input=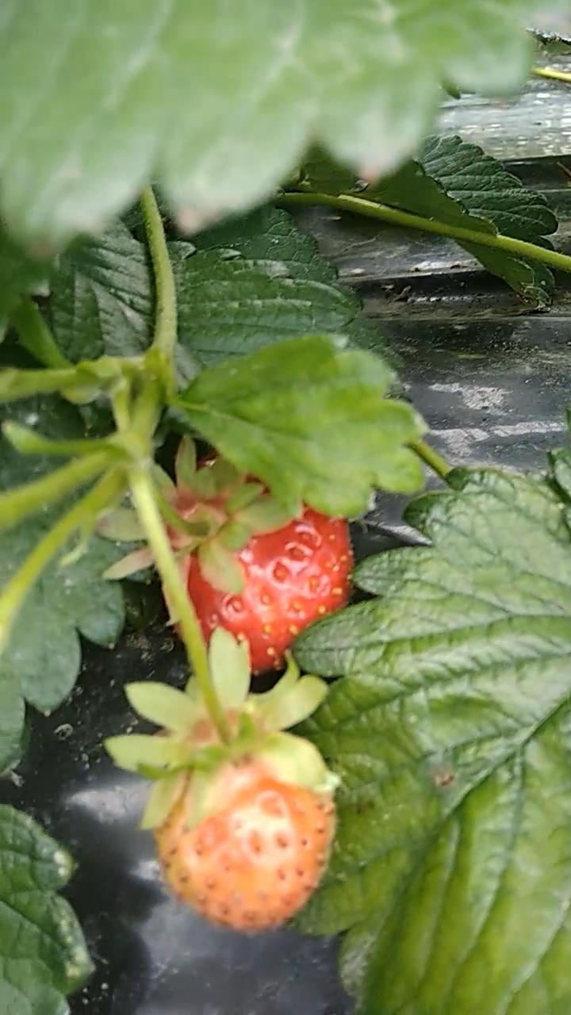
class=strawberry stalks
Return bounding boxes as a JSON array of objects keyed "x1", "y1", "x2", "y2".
[
  {"x1": 113, "y1": 486, "x2": 257, "y2": 780},
  {"x1": 126, "y1": 466, "x2": 235, "y2": 573}
]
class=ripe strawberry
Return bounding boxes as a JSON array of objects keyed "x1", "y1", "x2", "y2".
[{"x1": 151, "y1": 443, "x2": 364, "y2": 672}]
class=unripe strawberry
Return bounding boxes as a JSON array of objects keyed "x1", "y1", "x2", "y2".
[{"x1": 142, "y1": 718, "x2": 341, "y2": 944}]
